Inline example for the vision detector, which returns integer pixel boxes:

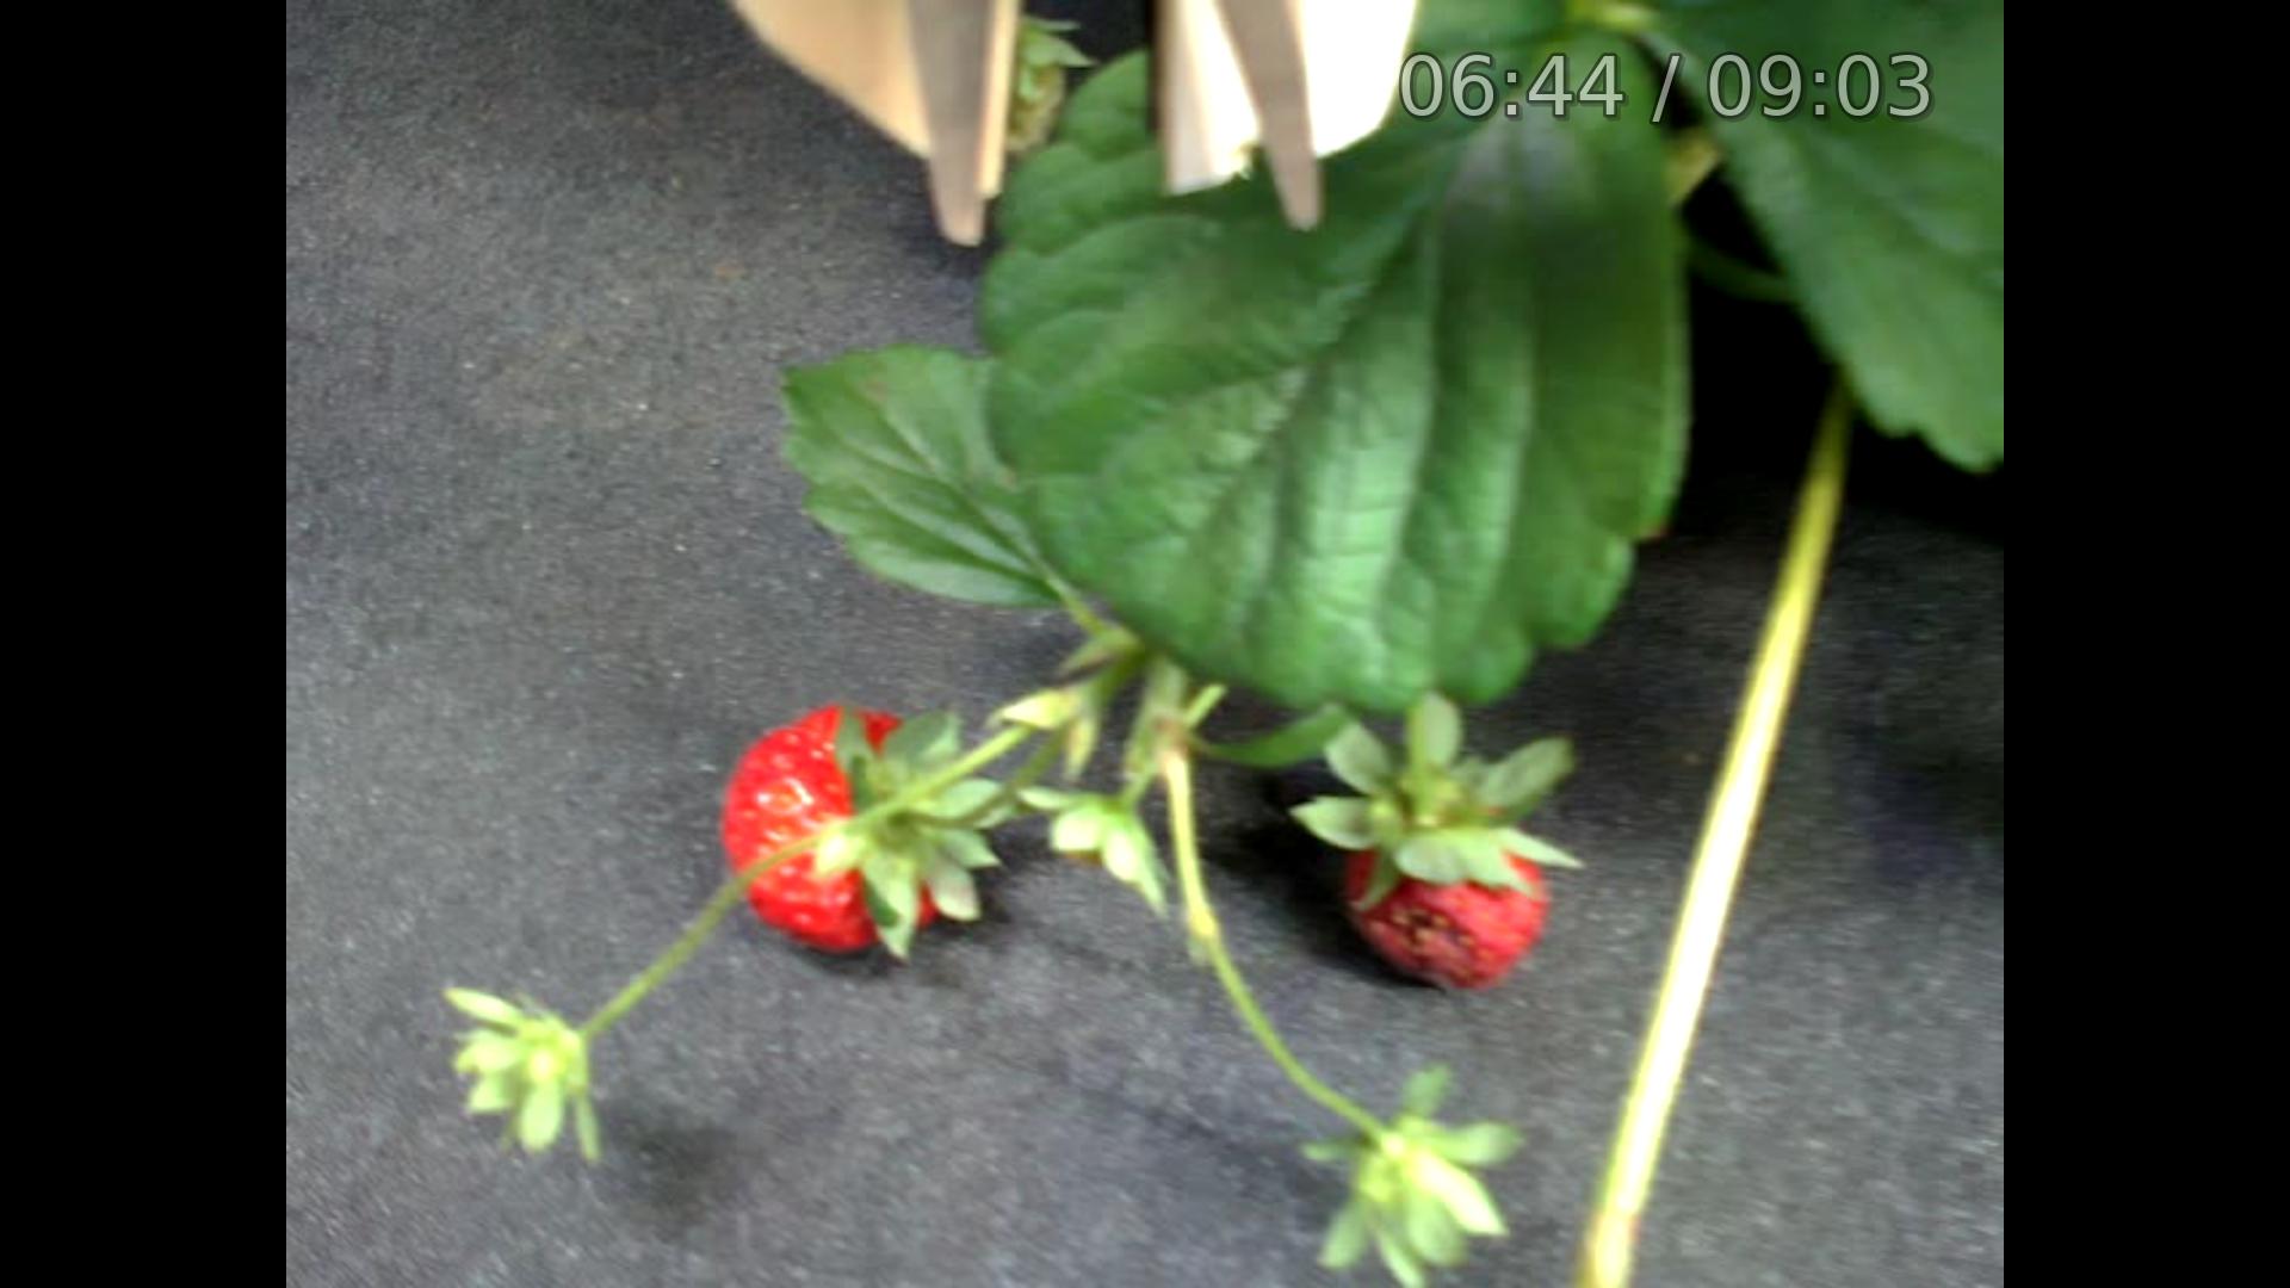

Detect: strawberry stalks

[1229,1018,1404,1171]
[541,944,679,1063]
[1103,733,1194,825]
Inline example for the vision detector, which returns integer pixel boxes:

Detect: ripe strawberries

[729,671,975,986]
[1347,805,1602,992]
